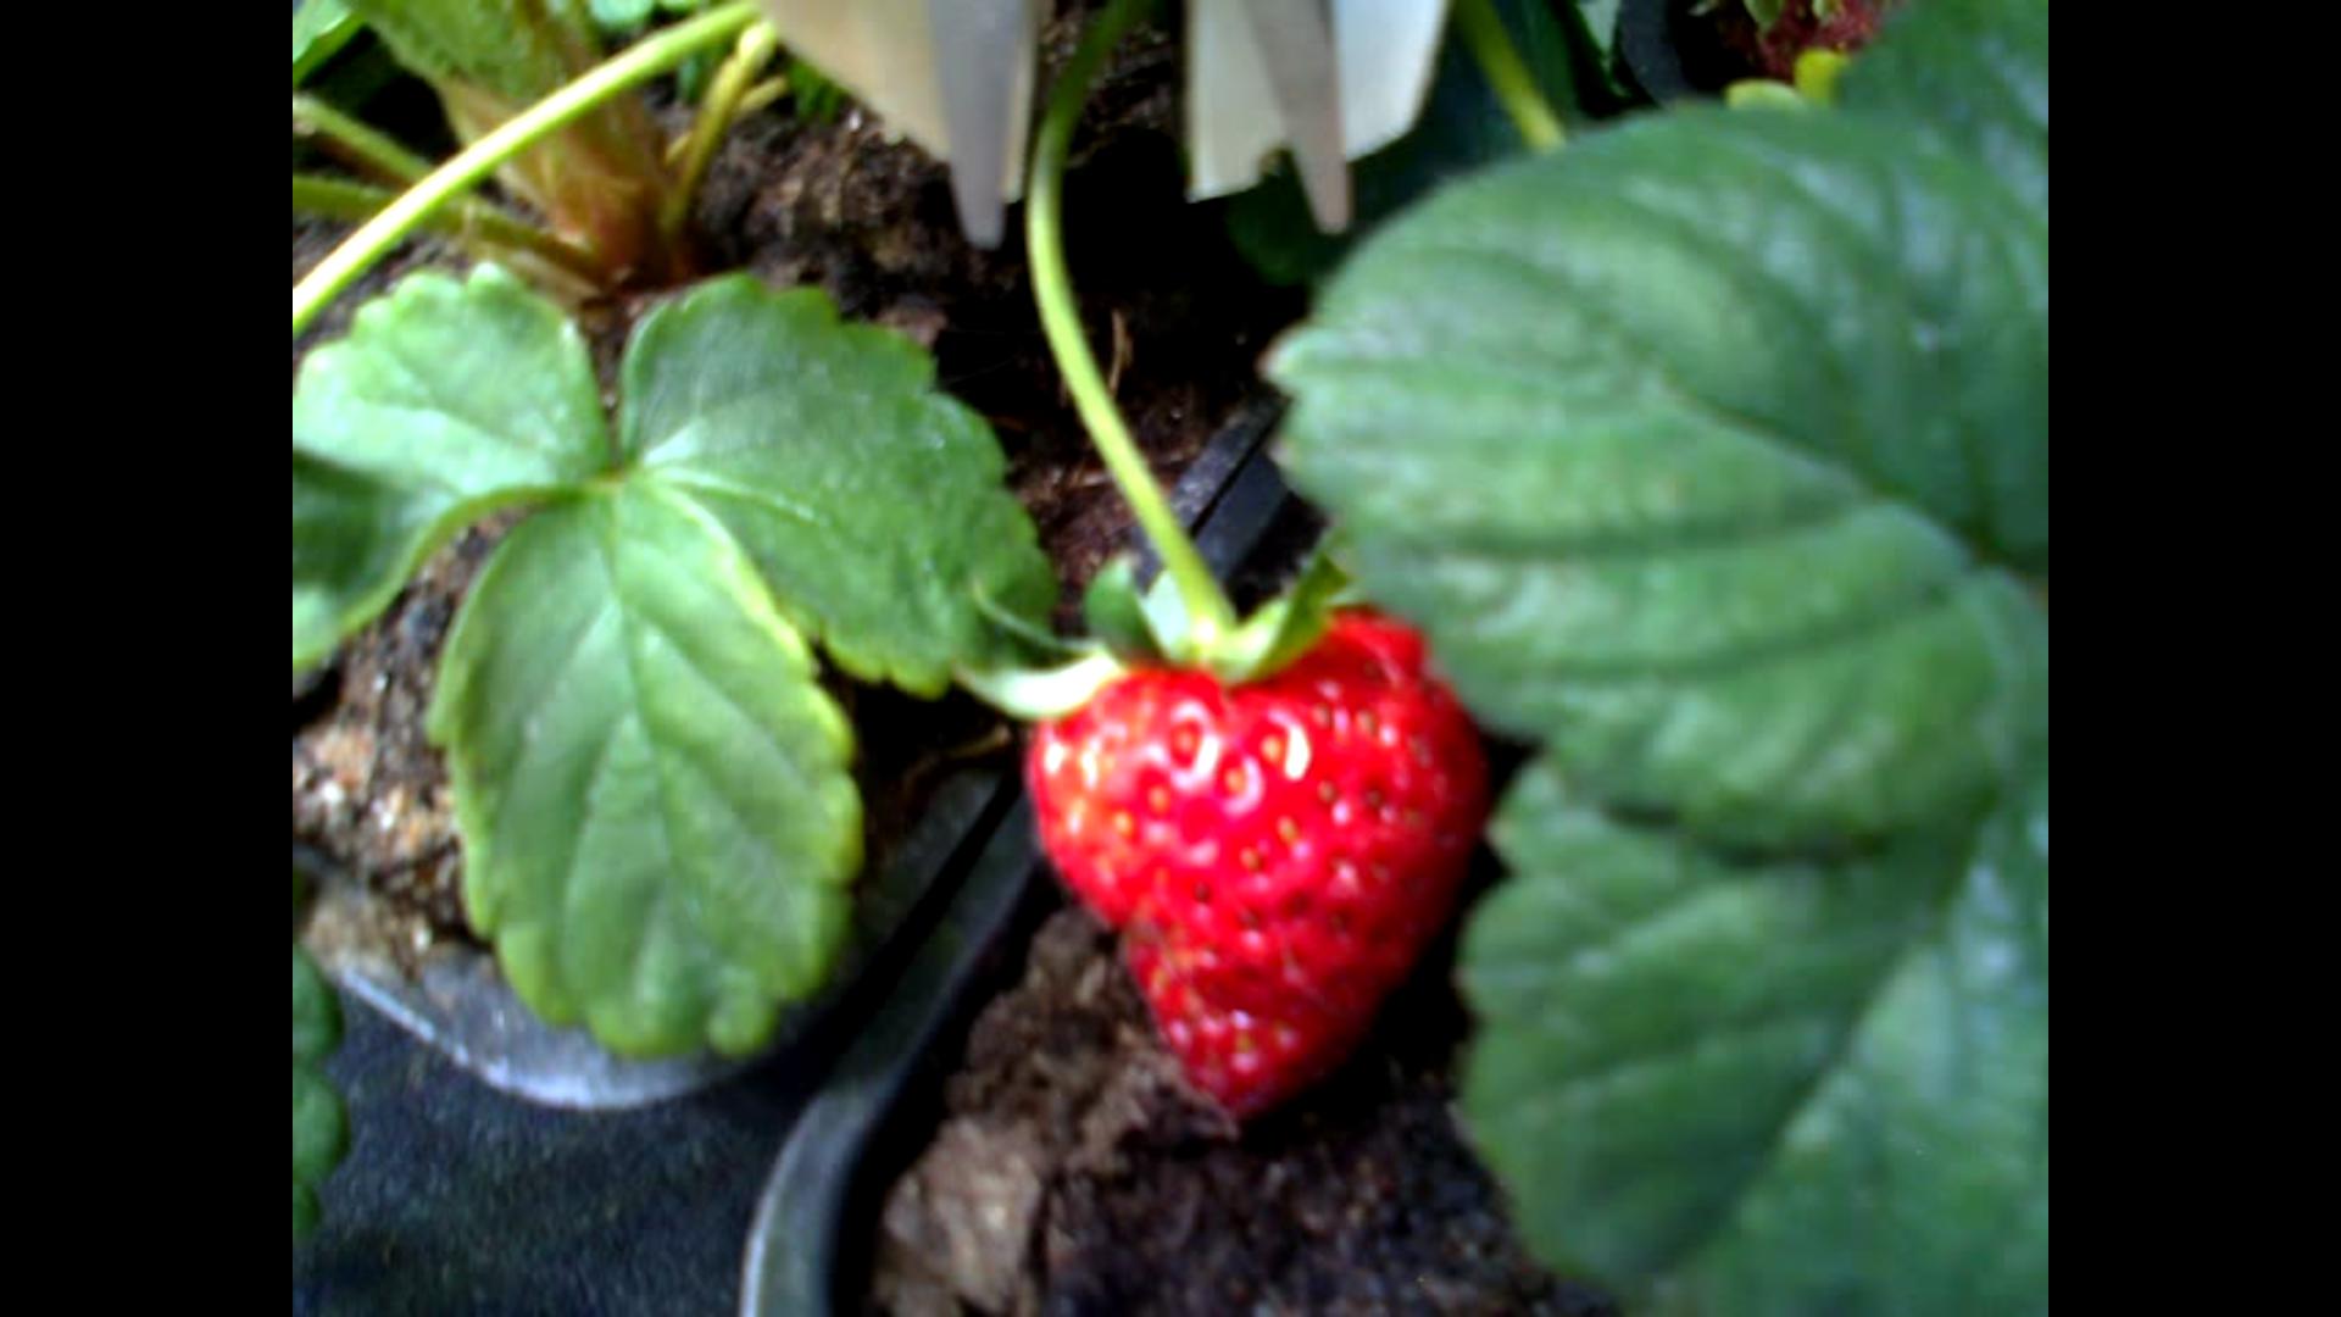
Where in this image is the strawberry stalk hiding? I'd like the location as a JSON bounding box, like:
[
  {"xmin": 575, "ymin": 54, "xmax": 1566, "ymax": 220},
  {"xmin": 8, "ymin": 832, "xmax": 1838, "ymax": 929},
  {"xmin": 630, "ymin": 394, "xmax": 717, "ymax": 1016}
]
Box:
[{"xmin": 1016, "ymin": 15, "xmax": 1267, "ymax": 707}]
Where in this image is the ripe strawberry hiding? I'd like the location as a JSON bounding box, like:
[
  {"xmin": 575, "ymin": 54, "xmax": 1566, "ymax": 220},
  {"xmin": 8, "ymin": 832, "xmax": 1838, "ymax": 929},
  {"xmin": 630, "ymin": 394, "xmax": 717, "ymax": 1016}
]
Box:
[{"xmin": 1007, "ymin": 624, "xmax": 1533, "ymax": 1095}]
